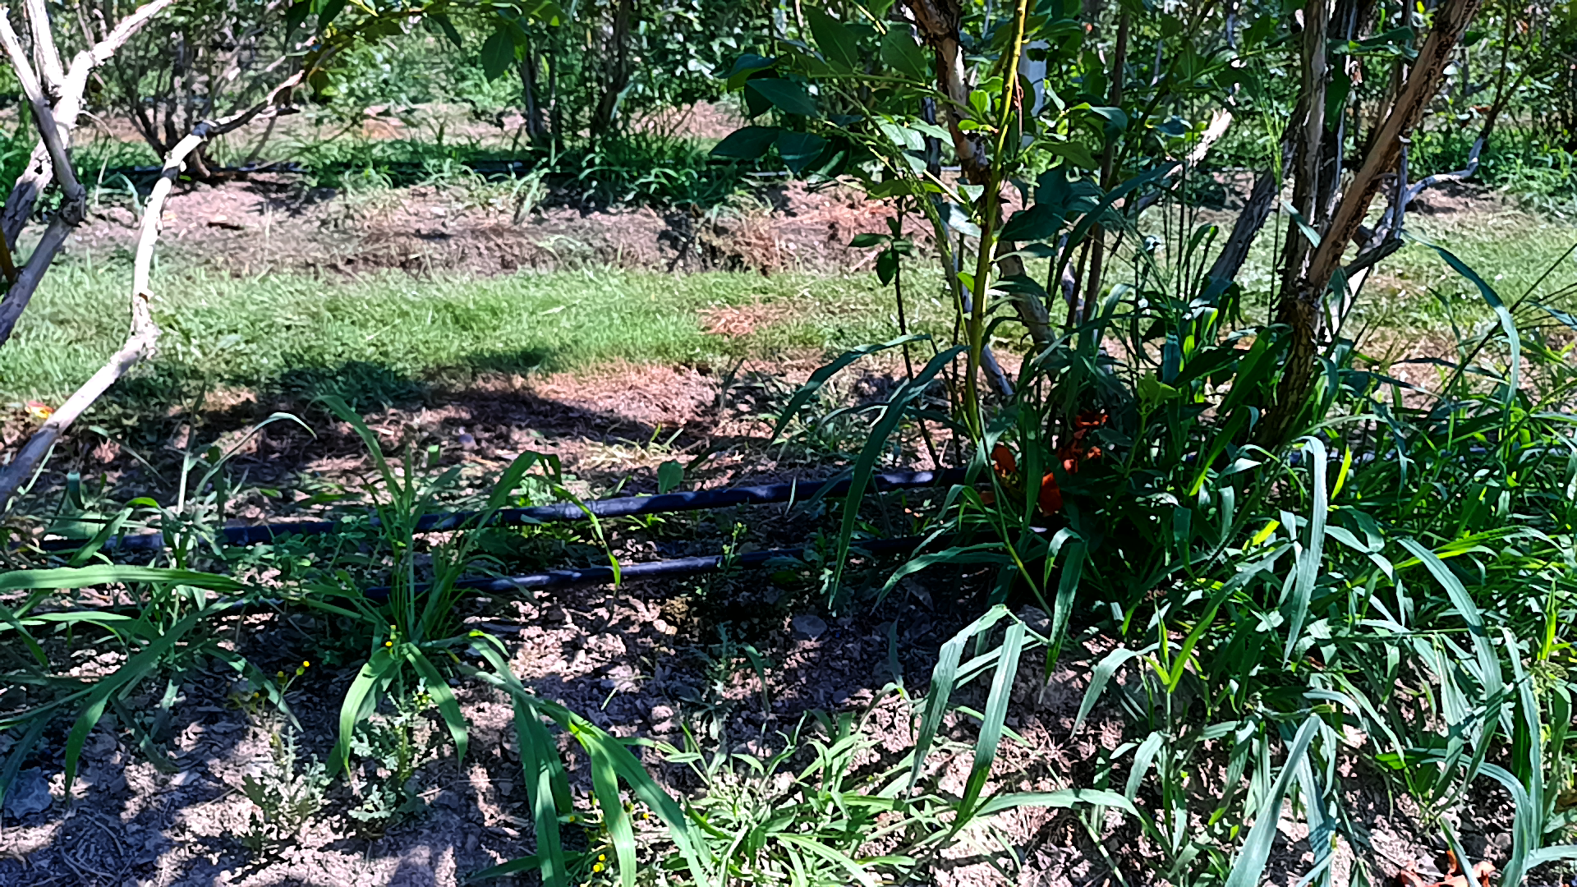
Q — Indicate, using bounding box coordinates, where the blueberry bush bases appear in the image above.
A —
[898,259,1384,726]
[0,158,170,650]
